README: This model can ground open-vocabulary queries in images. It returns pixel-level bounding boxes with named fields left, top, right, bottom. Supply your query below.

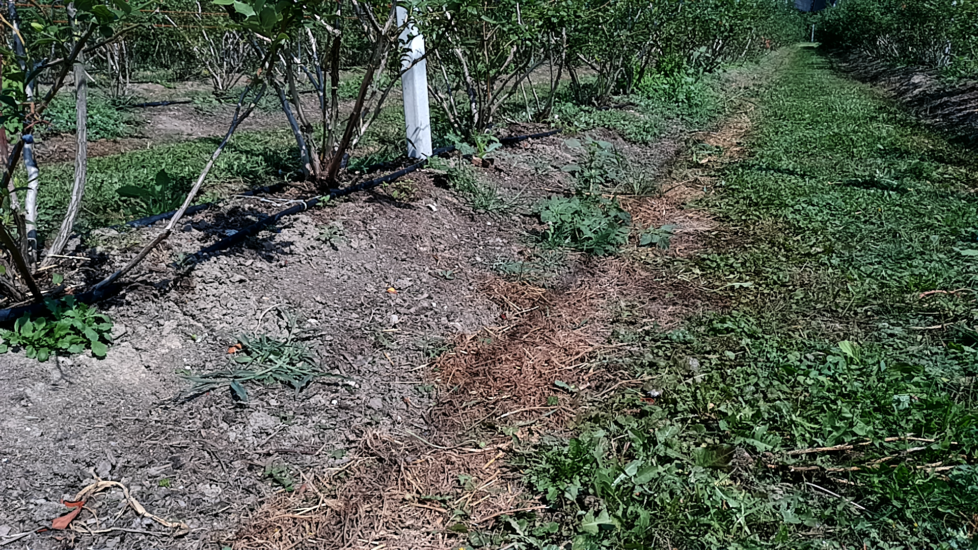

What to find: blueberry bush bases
left=558, top=78, right=618, bottom=116
left=203, top=74, right=241, bottom=104
left=271, top=115, right=384, bottom=208
left=101, top=82, right=138, bottom=113
left=511, top=89, right=565, bottom=137
left=0, top=168, right=198, bottom=355
left=439, top=91, right=520, bottom=159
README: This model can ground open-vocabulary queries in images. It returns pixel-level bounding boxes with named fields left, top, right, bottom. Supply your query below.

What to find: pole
left=392, top=13, right=438, bottom=170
